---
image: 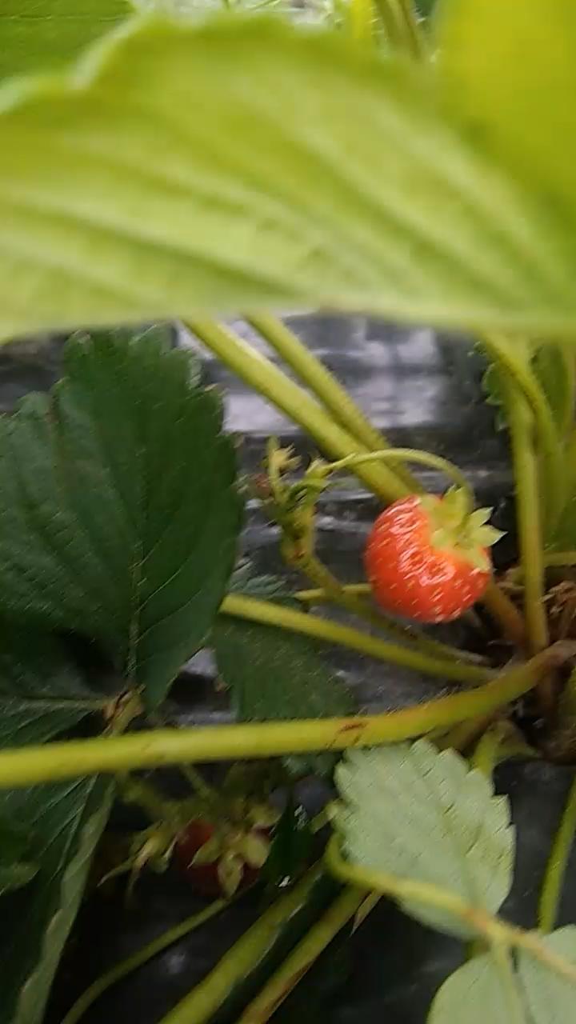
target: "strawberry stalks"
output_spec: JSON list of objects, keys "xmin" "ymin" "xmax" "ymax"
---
[
  {"xmin": 299, "ymin": 448, "xmax": 488, "ymax": 550},
  {"xmin": 164, "ymin": 752, "xmax": 241, "ymax": 840}
]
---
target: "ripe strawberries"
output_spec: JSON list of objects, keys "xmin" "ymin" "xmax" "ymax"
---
[
  {"xmin": 175, "ymin": 775, "xmax": 280, "ymax": 906},
  {"xmin": 363, "ymin": 490, "xmax": 496, "ymax": 630}
]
